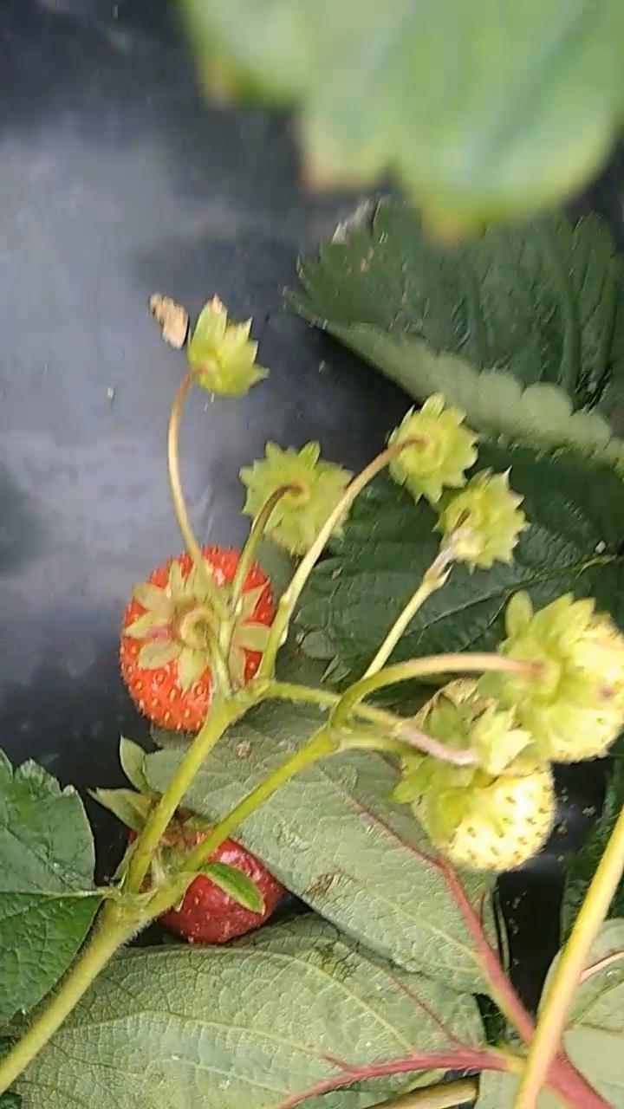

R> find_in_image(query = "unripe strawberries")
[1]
[402,704,562,868]
[497,603,624,765]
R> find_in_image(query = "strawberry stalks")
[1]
[354,415,432,483]
[401,490,504,619]
[246,464,307,551]
[402,636,562,685]
[188,597,249,707]
[156,315,241,447]
[368,697,485,781]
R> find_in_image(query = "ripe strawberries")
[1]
[165,824,282,940]
[117,544,281,737]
